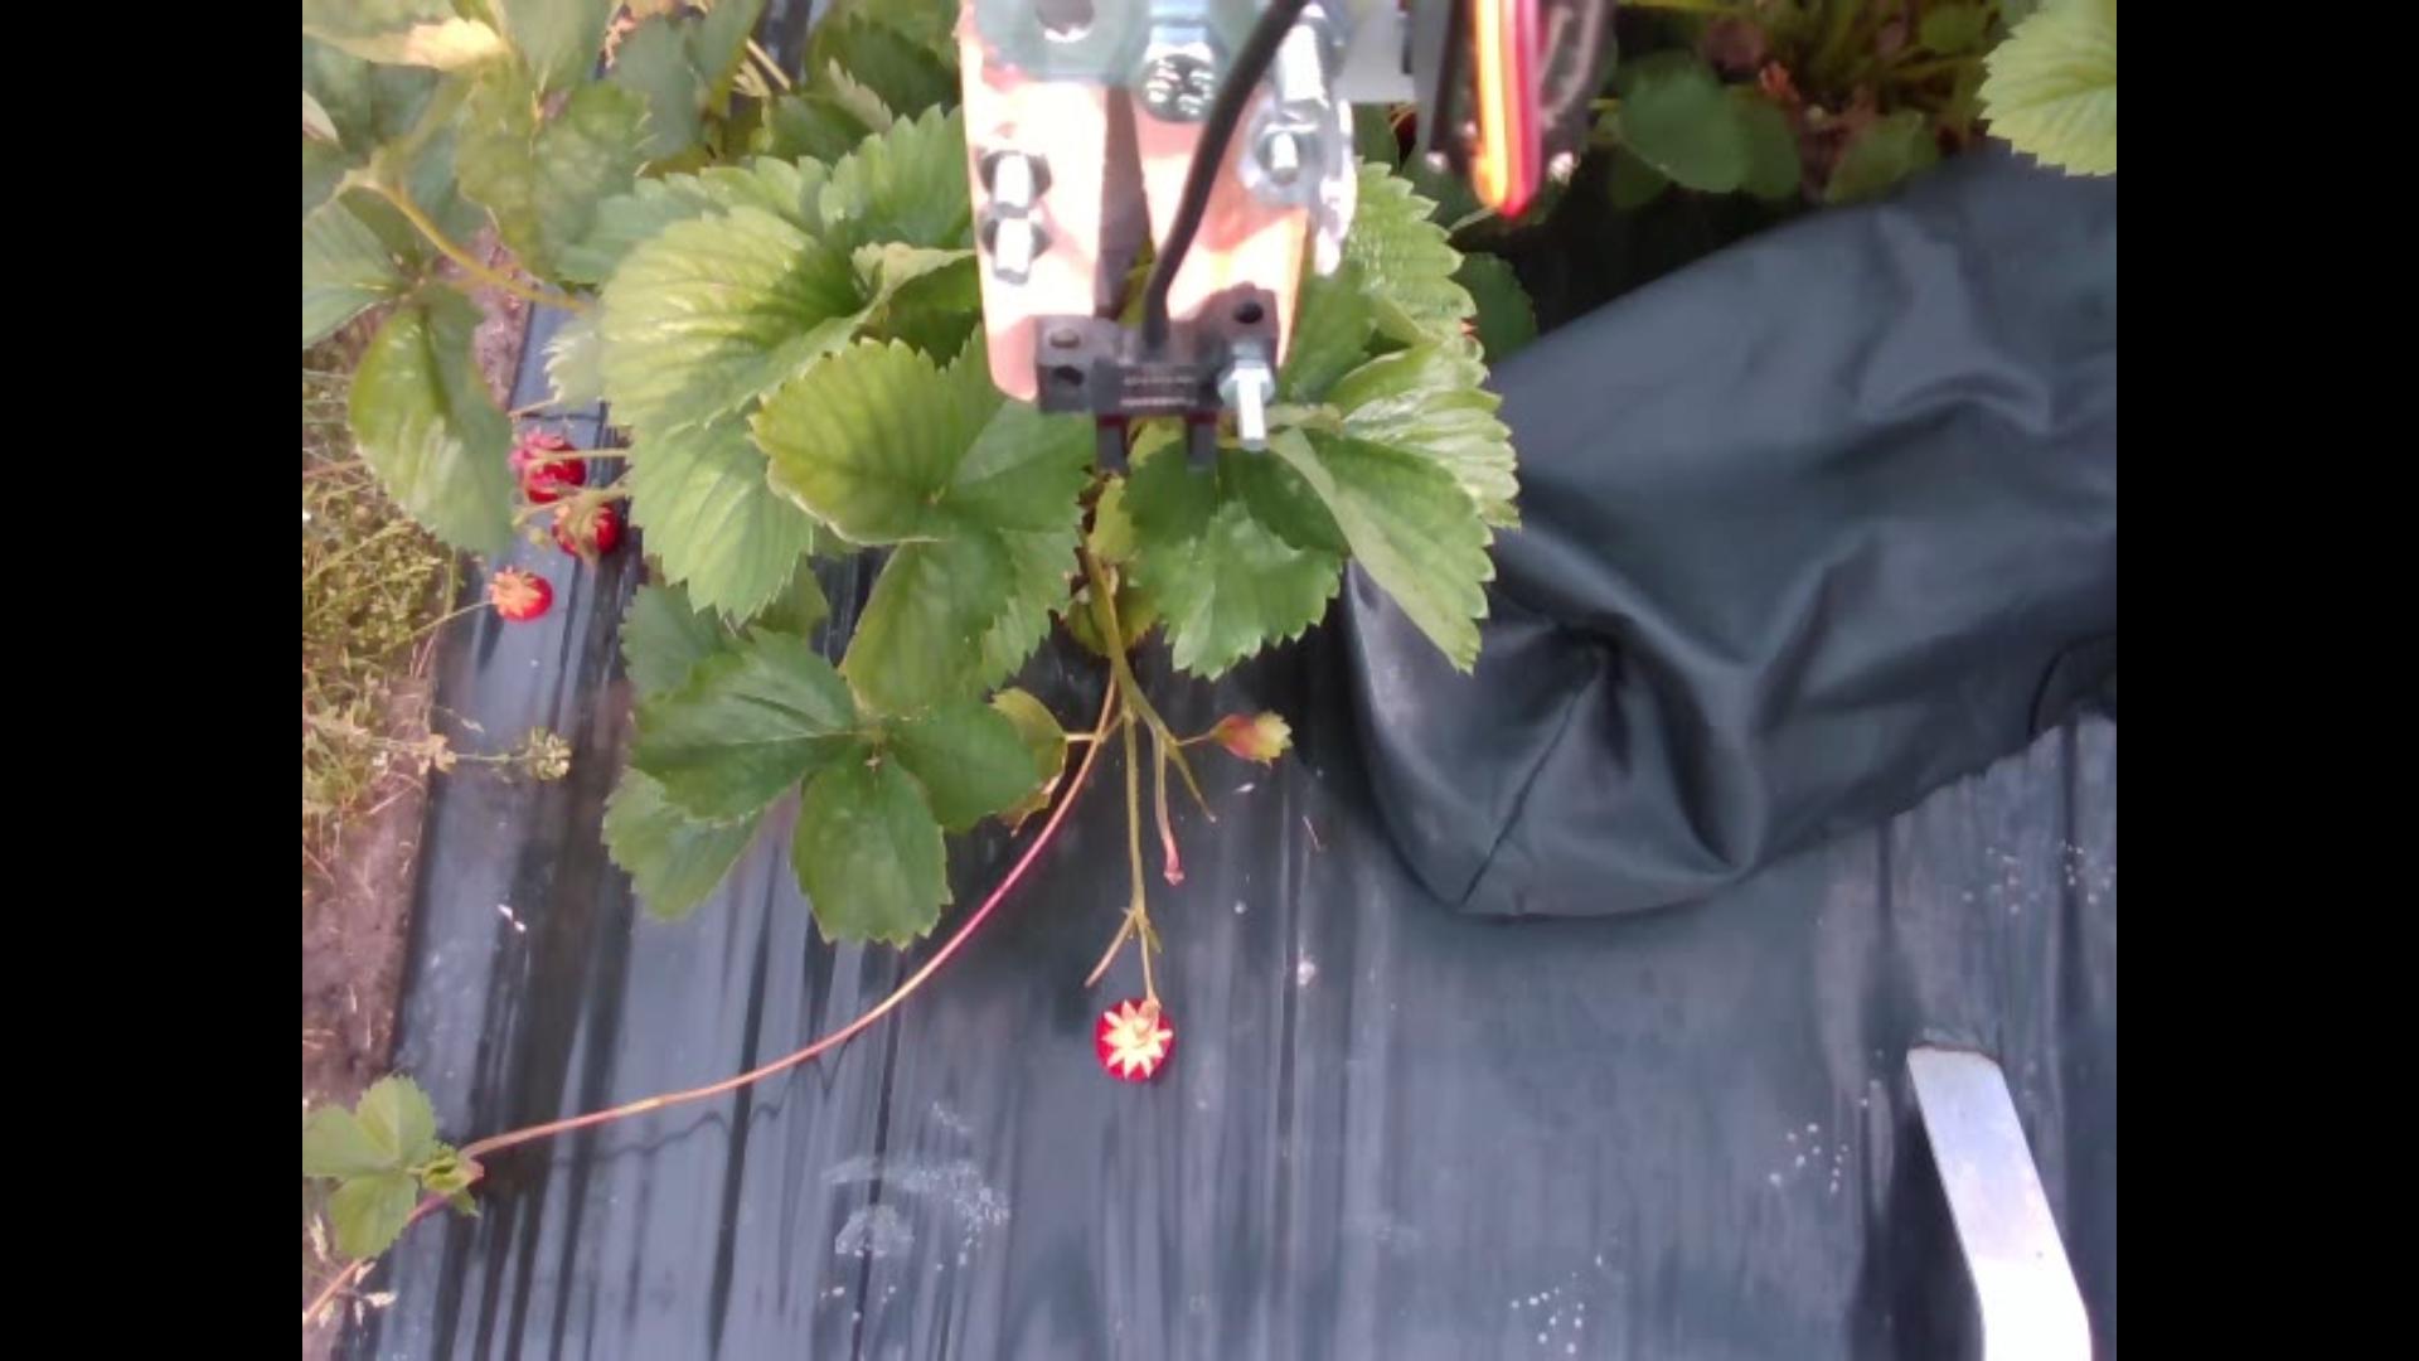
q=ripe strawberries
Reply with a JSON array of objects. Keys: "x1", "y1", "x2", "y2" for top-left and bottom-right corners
[
  {"x1": 498, "y1": 416, "x2": 608, "y2": 507},
  {"x1": 1090, "y1": 1000, "x2": 1187, "y2": 1089},
  {"x1": 552, "y1": 482, "x2": 638, "y2": 575},
  {"x1": 479, "y1": 561, "x2": 565, "y2": 636}
]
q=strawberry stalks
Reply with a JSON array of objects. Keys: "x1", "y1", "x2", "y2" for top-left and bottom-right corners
[
  {"x1": 536, "y1": 437, "x2": 638, "y2": 474},
  {"x1": 427, "y1": 584, "x2": 513, "y2": 641},
  {"x1": 1121, "y1": 875, "x2": 1162, "y2": 1034}
]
